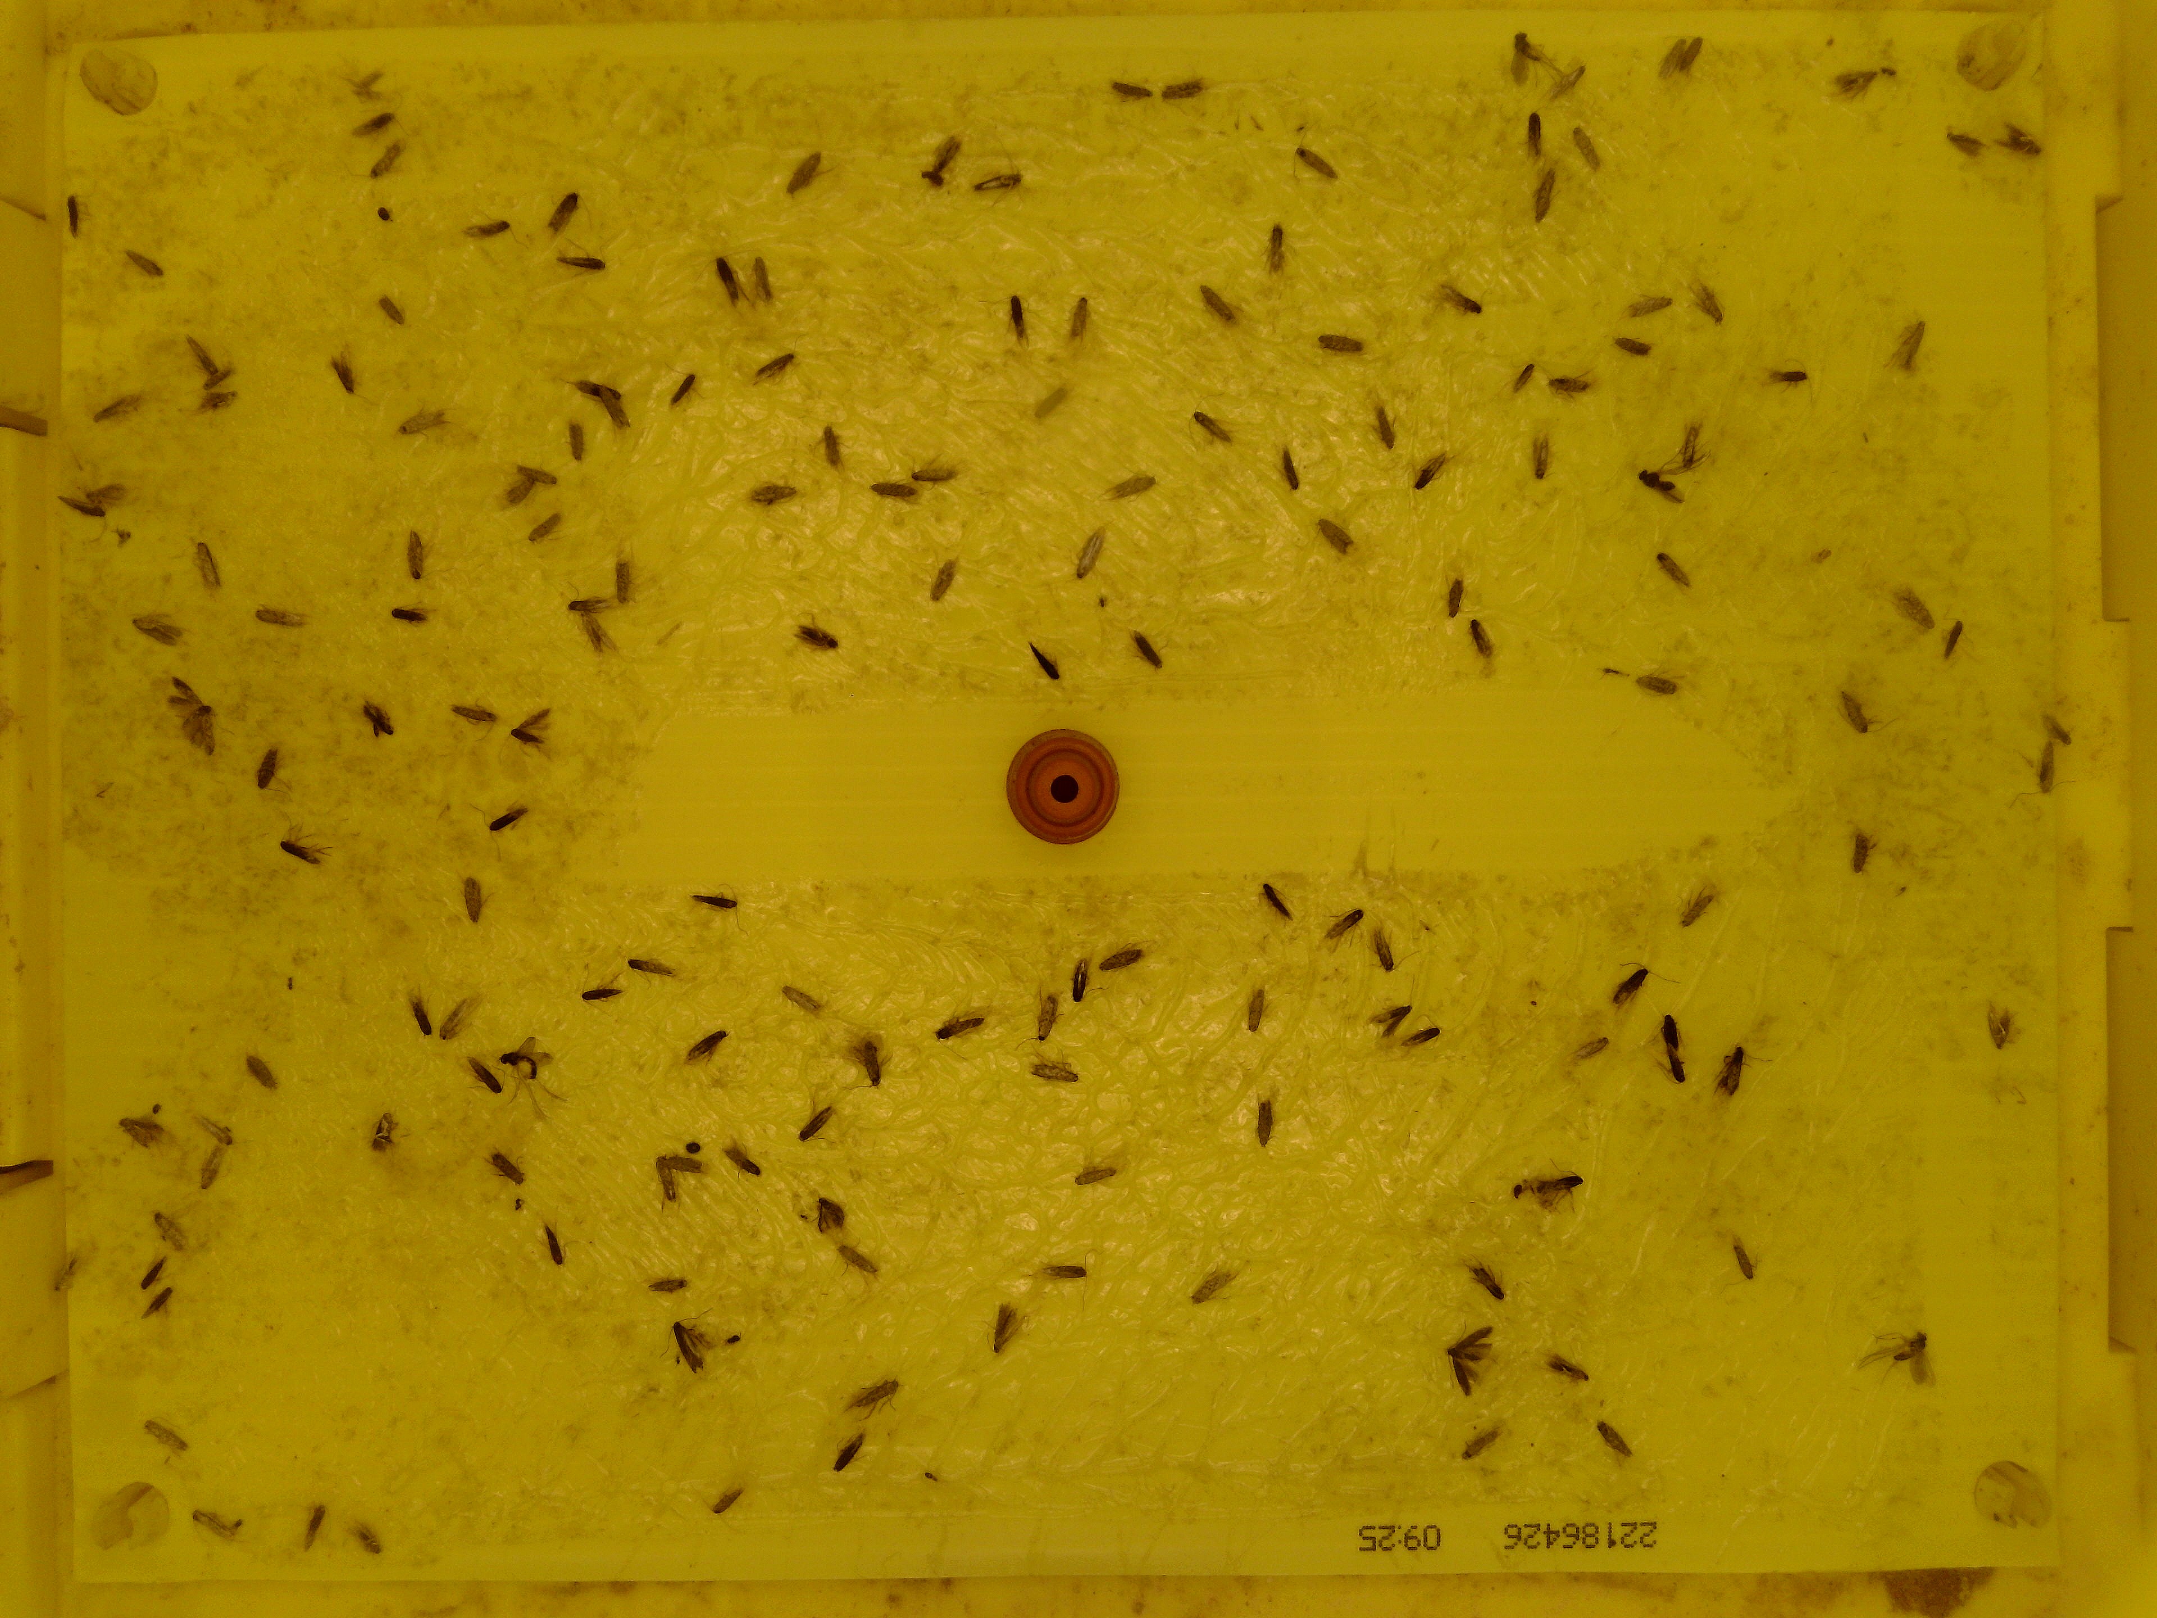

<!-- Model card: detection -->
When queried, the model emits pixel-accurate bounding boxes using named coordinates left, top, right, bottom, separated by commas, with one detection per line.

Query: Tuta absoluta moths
left=1545, top=1348, right=1587, bottom=1387
left=1130, top=628, right=1164, bottom=671
left=1314, top=328, right=1368, bottom=361
left=668, top=370, right=698, bottom=408
left=1835, top=66, right=1889, bottom=98
left=1035, top=379, right=1069, bottom=422
left=931, top=1010, right=990, bottom=1046
left=1446, top=576, right=1464, bottom=620
left=256, top=746, right=281, bottom=789
left=1190, top=405, right=1234, bottom=450
left=193, top=536, right=220, bottom=590
left=991, top=1302, right=1016, bottom=1355
left=835, top=1242, right=879, bottom=1279
left=1075, top=529, right=1105, bottom=581
left=1254, top=1094, right=1276, bottom=1148
left=798, top=1102, right=837, bottom=1142
left=1655, top=549, right=1691, bottom=590
left=197, top=1144, right=224, bottom=1189
left=1325, top=905, right=1363, bottom=945
left=1295, top=139, right=1337, bottom=181
left=1549, top=369, right=1592, bottom=398
left=489, top=802, right=529, bottom=833
left=487, top=1146, right=527, bottom=1187
left=1613, top=964, right=1648, bottom=1008
left=141, top=1285, right=175, bottom=1322
left=1068, top=292, right=1091, bottom=345
left=1038, top=1258, right=1090, bottom=1286
left=125, top=246, right=164, bottom=279
left=929, top=133, right=961, bottom=180
left=1475, top=1262, right=1508, bottom=1301
left=450, top=698, right=498, bottom=729
left=568, top=413, right=587, bottom=461
left=686, top=1027, right=728, bottom=1066
left=406, top=528, right=427, bottom=582
left=1262, top=880, right=1294, bottom=925
left=1942, top=614, right=1965, bottom=661
left=754, top=351, right=797, bottom=383
left=1659, top=1010, right=1689, bottom=1083
left=251, top=599, right=312, bottom=633
left=1531, top=431, right=1552, bottom=480
left=971, top=167, right=1028, bottom=199
left=370, top=139, right=402, bottom=179
left=1523, top=110, right=1546, bottom=157
left=1634, top=669, right=1682, bottom=698
left=1109, top=467, right=1159, bottom=503
left=718, top=1137, right=763, bottom=1180
left=514, top=457, right=557, bottom=487
left=794, top=618, right=841, bottom=652
left=469, top=1056, right=503, bottom=1097
left=145, top=1417, right=186, bottom=1455
left=547, top=189, right=579, bottom=237
left=1680, top=883, right=1719, bottom=928
left=1276, top=450, right=1302, bottom=493
left=378, top=292, right=406, bottom=328
left=1575, top=122, right=1604, bottom=174
left=558, top=252, right=608, bottom=274
left=1596, top=1417, right=1633, bottom=1466
left=744, top=476, right=800, bottom=510
left=1626, top=292, right=1674, bottom=321
left=1948, top=130, right=1985, bottom=158
left=128, top=607, right=186, bottom=647
left=1245, top=984, right=1268, bottom=1033
left=1401, top=1024, right=1444, bottom=1054
left=244, top=1047, right=279, bottom=1092
left=461, top=874, right=487, bottom=925
left=1315, top=516, right=1354, bottom=557
left=116, top=1112, right=163, bottom=1148
left=1694, top=280, right=1724, bottom=322
left=1008, top=289, right=1032, bottom=347
left=1838, top=688, right=1872, bottom=733
left=1769, top=365, right=1810, bottom=388
left=1098, top=944, right=1145, bottom=975
left=1895, top=586, right=1935, bottom=633
left=442, top=992, right=472, bottom=1044
left=1029, top=1060, right=1083, bottom=1086
left=66, top=190, right=83, bottom=241
left=1531, top=170, right=1559, bottom=222
left=1161, top=76, right=1205, bottom=106
left=1110, top=76, right=1154, bottom=103
left=1412, top=448, right=1451, bottom=494
left=155, top=1206, right=192, bottom=1247
left=1614, top=331, right=1655, bottom=357
left=1027, top=639, right=1061, bottom=681
left=1459, top=1421, right=1503, bottom=1463
left=390, top=604, right=429, bottom=626
left=1729, top=1238, right=1758, bottom=1282
left=709, top=1483, right=747, bottom=1517
left=930, top=556, right=958, bottom=605
left=1468, top=616, right=1495, bottom=661
left=50, top=1250, right=83, bottom=1296
left=351, top=108, right=395, bottom=138
left=1372, top=403, right=1396, bottom=451
left=647, top=1270, right=688, bottom=1296
left=1189, top=1262, right=1232, bottom=1310
left=785, top=148, right=823, bottom=196
left=753, top=253, right=774, bottom=304
left=526, top=510, right=561, bottom=547
left=1892, top=318, right=1926, bottom=372
left=831, top=1431, right=867, bottom=1474
left=1199, top=282, right=1236, bottom=327
left=869, top=477, right=921, bottom=506
left=137, top=1254, right=167, bottom=1290
left=541, top=1222, right=566, bottom=1267
left=353, top=1519, right=384, bottom=1555
left=302, top=1502, right=327, bottom=1550
left=1440, top=282, right=1482, bottom=317
left=331, top=349, right=357, bottom=395
left=463, top=213, right=514, bottom=243
left=397, top=405, right=450, bottom=438
left=363, top=697, right=395, bottom=739
left=1987, top=1001, right=2013, bottom=1049
left=579, top=983, right=625, bottom=1006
